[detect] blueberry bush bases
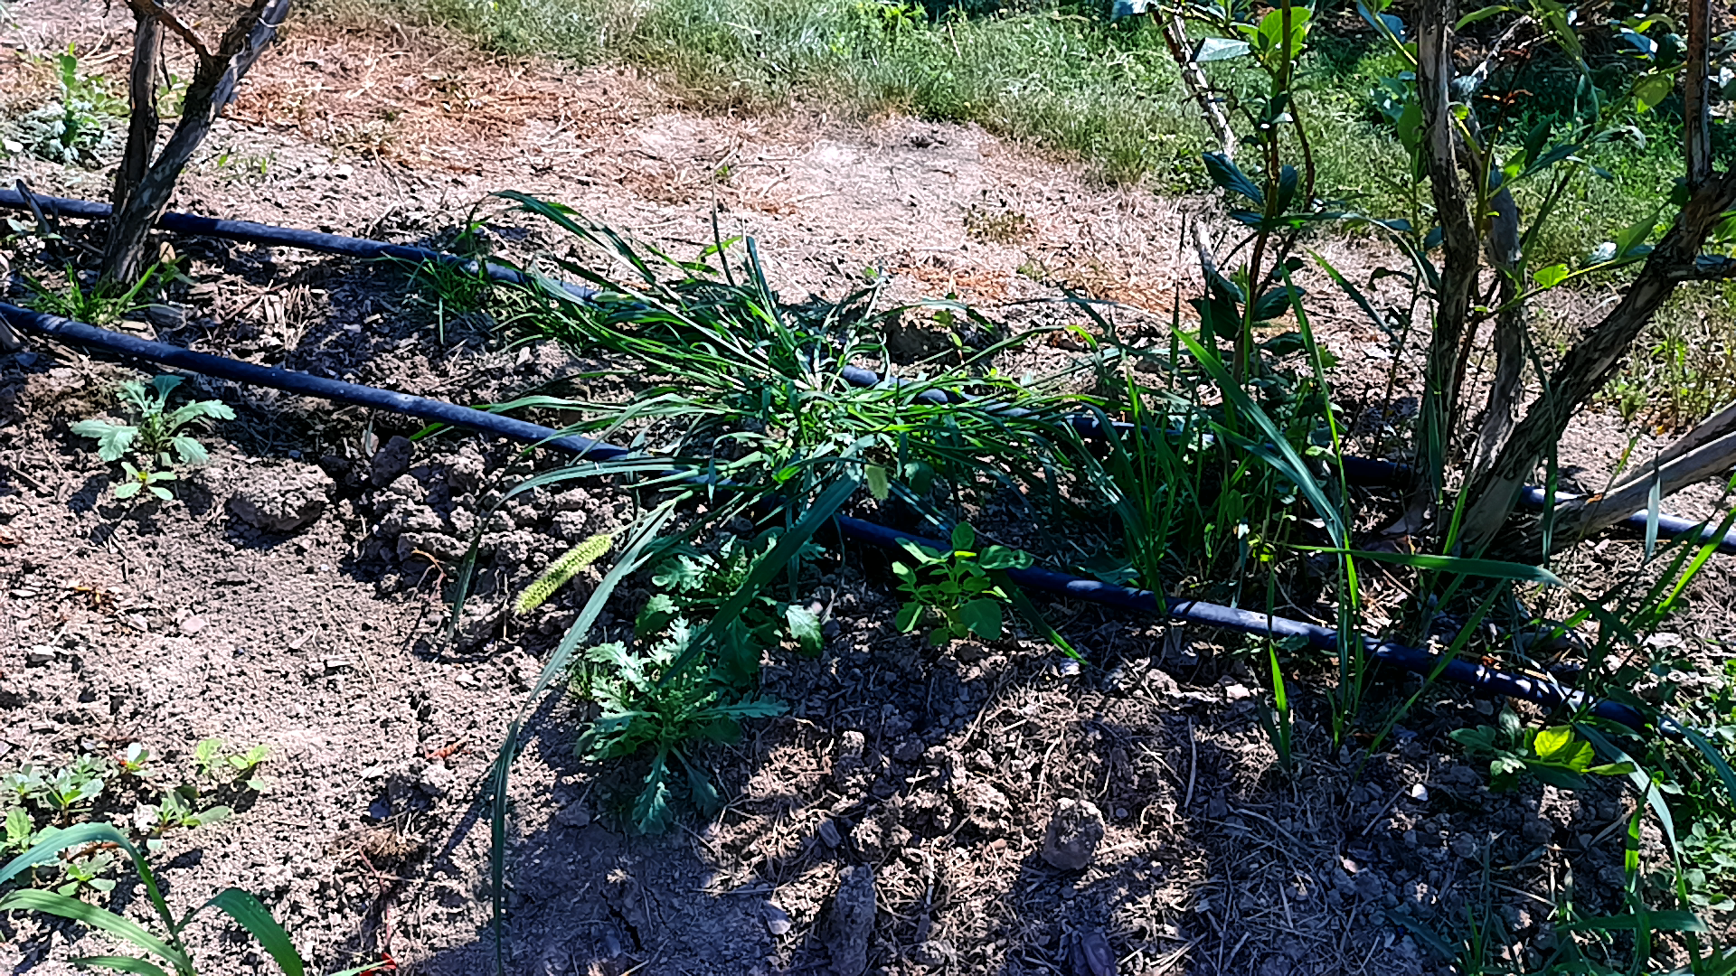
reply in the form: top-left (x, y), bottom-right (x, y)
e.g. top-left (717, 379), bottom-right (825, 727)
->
top-left (1176, 326), bottom-right (1683, 698)
top-left (12, 77), bottom-right (283, 396)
